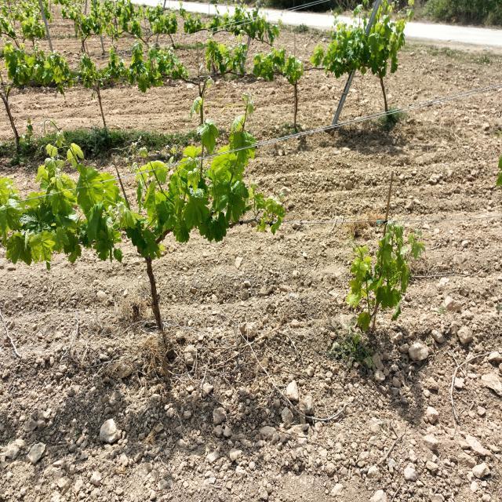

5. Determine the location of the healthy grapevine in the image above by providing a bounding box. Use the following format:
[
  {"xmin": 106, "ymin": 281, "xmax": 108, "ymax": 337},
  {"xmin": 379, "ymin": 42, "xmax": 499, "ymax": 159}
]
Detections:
[{"xmin": 0, "ymin": 119, "xmax": 292, "ymax": 383}]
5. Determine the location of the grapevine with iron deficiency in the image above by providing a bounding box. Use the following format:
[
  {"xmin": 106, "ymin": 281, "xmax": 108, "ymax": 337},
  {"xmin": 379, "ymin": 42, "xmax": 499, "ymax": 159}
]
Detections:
[{"xmin": 342, "ymin": 212, "xmax": 431, "ymax": 361}]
